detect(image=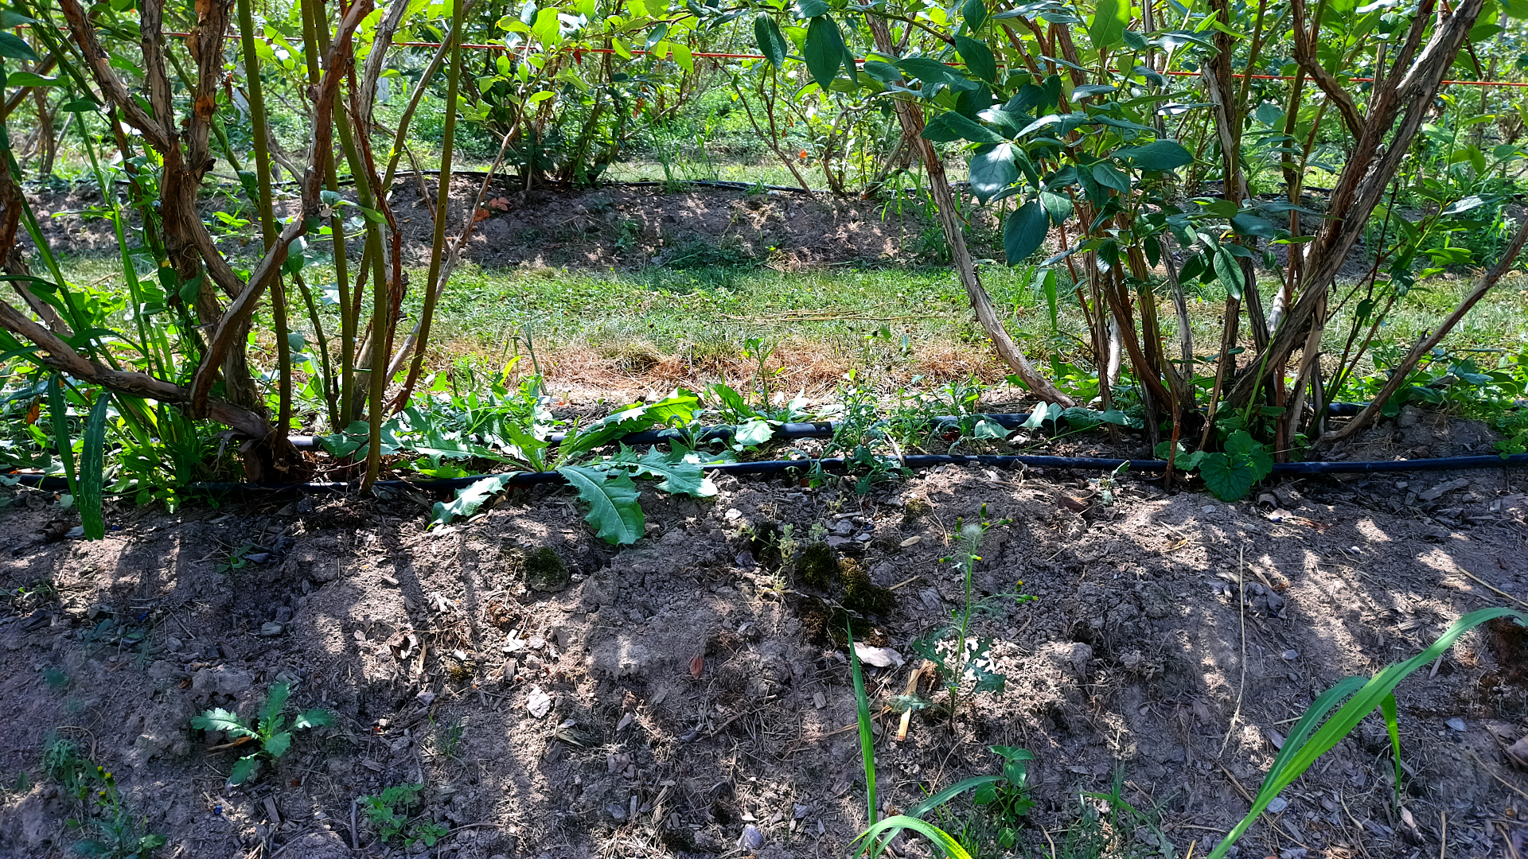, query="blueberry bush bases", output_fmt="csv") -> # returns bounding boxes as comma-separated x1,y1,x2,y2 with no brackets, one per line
761,129,929,239
481,126,626,220
980,263,1447,546
6,251,484,560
